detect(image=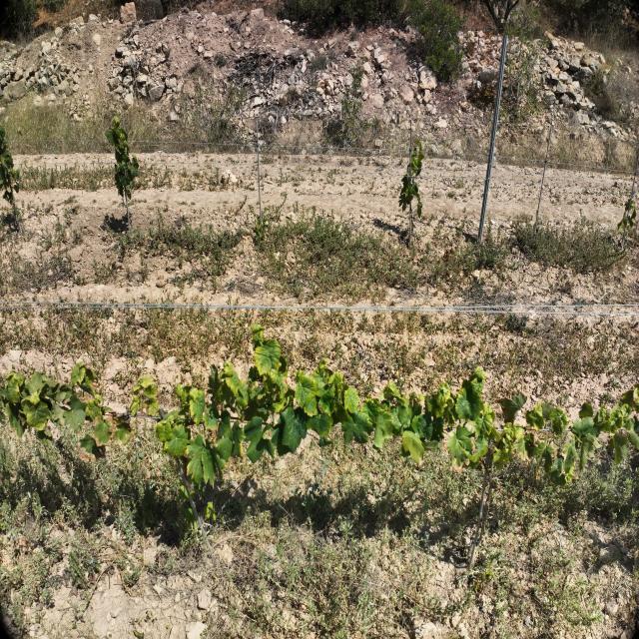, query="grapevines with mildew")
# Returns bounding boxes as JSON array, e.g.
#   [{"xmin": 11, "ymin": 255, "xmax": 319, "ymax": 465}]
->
[
  {"xmin": 0, "ymin": 320, "xmax": 314, "ymax": 536},
  {"xmin": 305, "ymin": 356, "xmax": 639, "ymax": 585}
]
